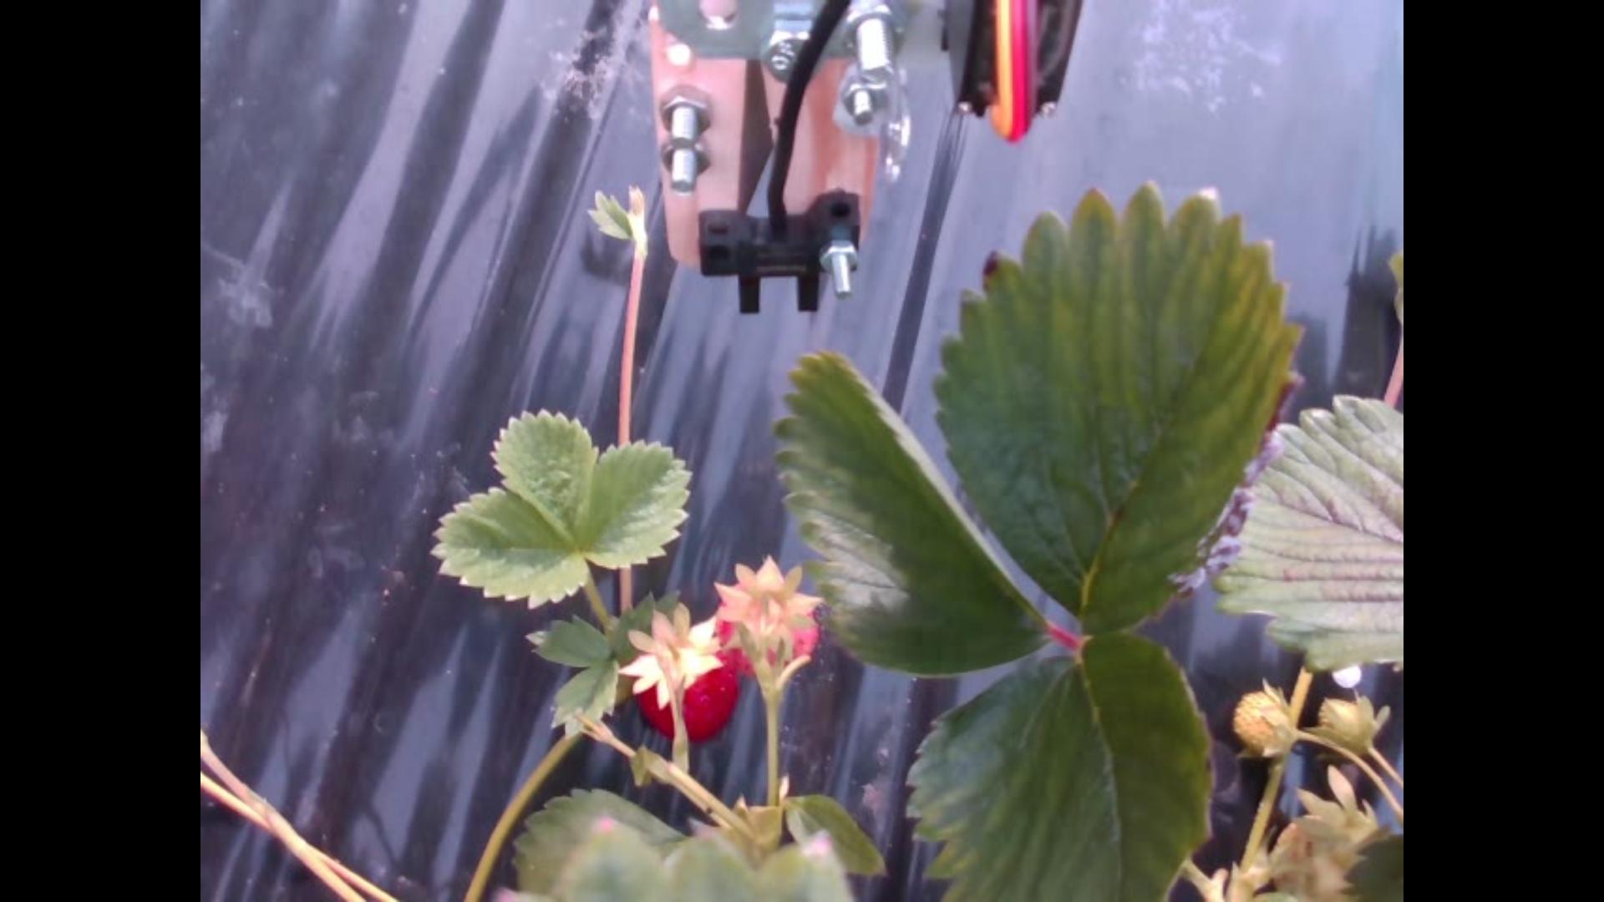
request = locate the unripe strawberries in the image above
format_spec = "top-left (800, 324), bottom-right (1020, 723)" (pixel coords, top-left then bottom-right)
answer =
top-left (717, 568), bottom-right (827, 674)
top-left (1226, 682), bottom-right (1305, 767)
top-left (1319, 691), bottom-right (1388, 754)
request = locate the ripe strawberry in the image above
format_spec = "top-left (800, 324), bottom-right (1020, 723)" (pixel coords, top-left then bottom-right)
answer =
top-left (627, 626), bottom-right (750, 737)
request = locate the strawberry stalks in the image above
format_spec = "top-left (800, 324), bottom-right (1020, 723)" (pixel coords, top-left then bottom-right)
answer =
top-left (1350, 730), bottom-right (1406, 770)
top-left (1288, 720), bottom-right (1343, 756)
top-left (748, 623), bottom-right (789, 760)
top-left (658, 640), bottom-right (693, 773)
